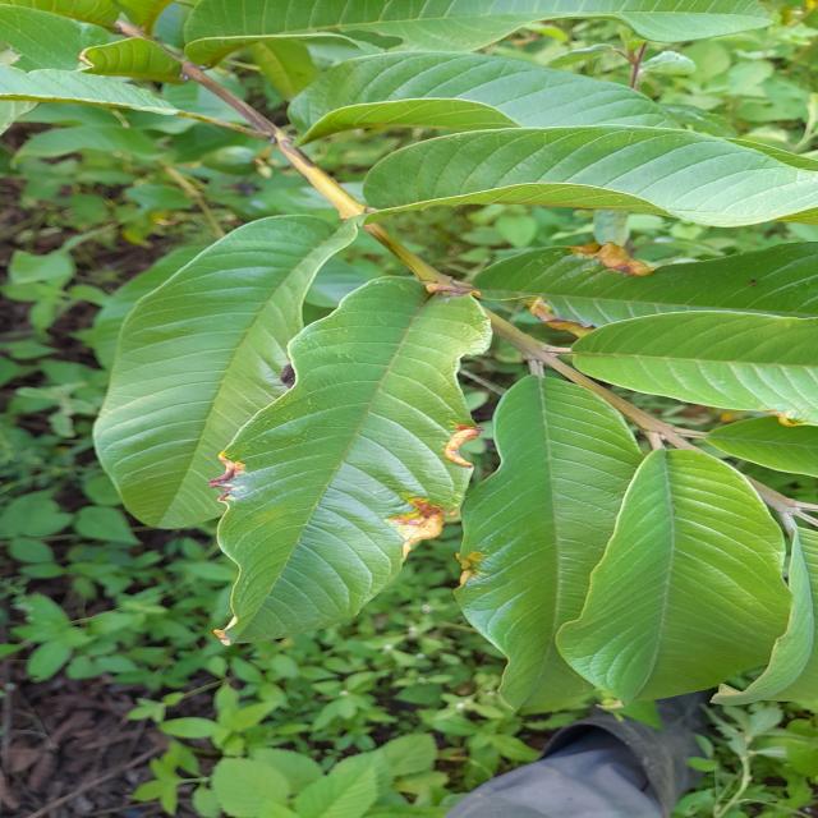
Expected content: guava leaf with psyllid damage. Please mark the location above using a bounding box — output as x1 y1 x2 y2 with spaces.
193 258 500 659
